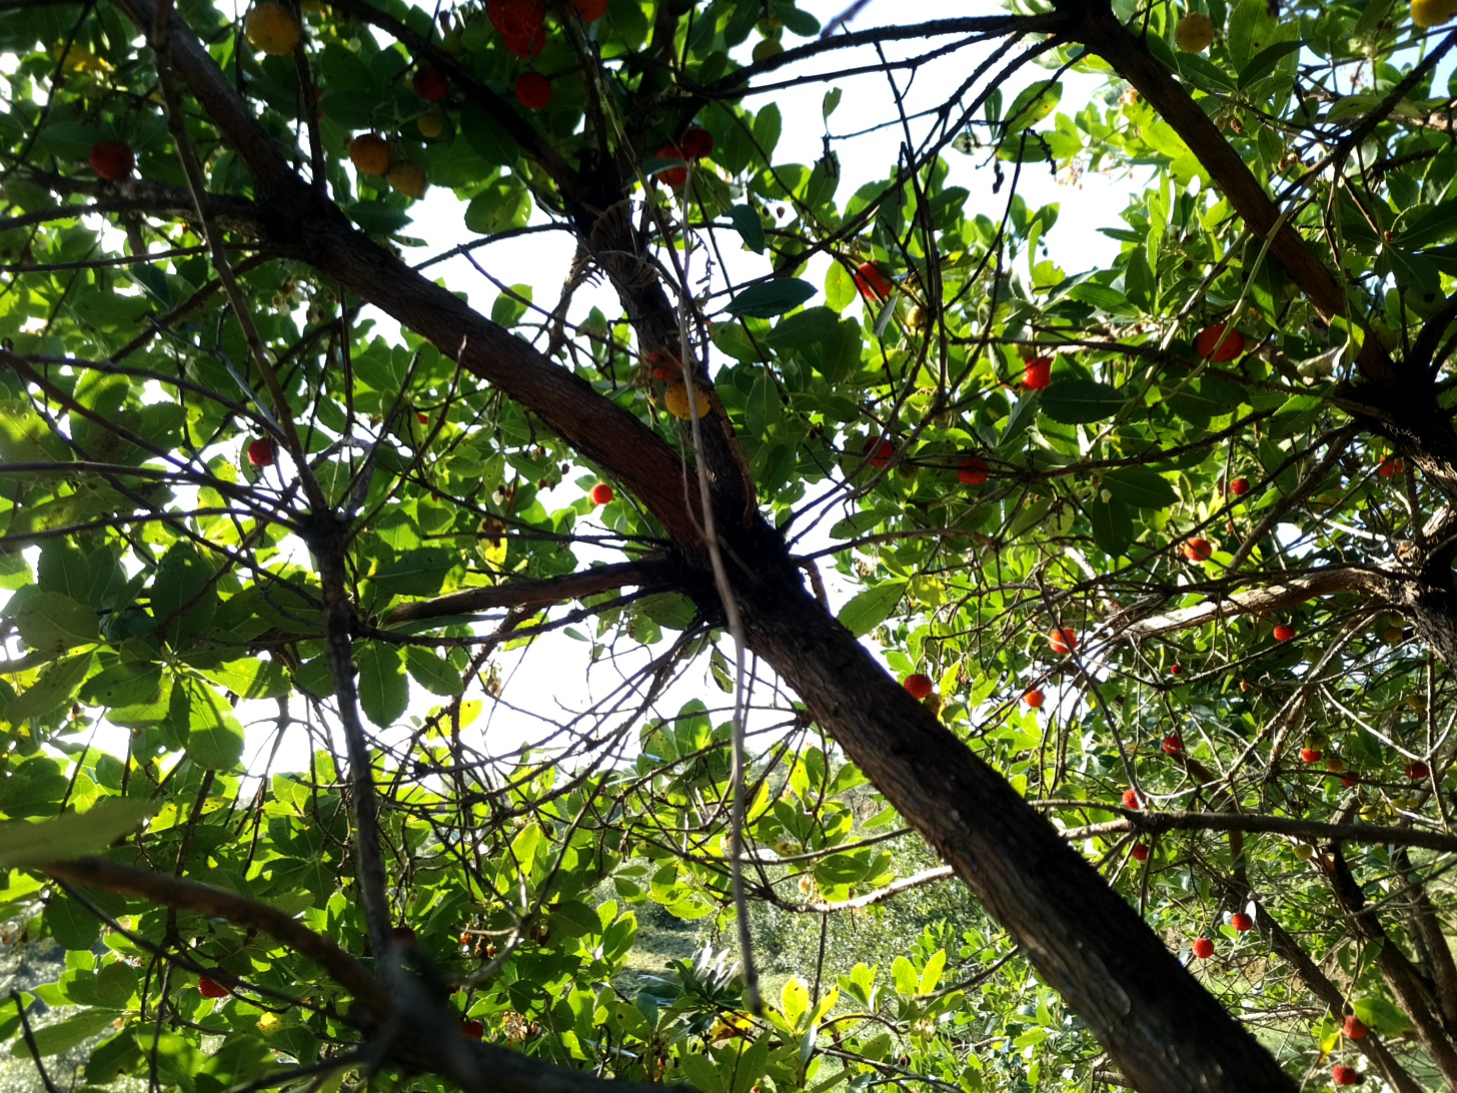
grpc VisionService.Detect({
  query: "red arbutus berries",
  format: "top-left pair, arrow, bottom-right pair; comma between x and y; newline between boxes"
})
593,486 -> 614,504
484,0 -> 546,37
414,65 -> 448,100
862,433 -> 893,465
1229,912 -> 1251,934
959,455 -> 987,483
1378,454 -> 1404,477
1343,1015 -> 1365,1039
1184,536 -> 1211,562
1122,787 -> 1144,808
1332,1062 -> 1357,1086
198,967 -> 237,1000
853,259 -> 892,300
505,23 -> 548,59
650,142 -> 696,184
1129,841 -> 1149,860
1273,624 -> 1295,642
1169,664 -> 1180,674
1019,354 -> 1057,389
461,1019 -> 486,1043
685,125 -> 716,153
1162,736 -> 1180,753
1342,771 -> 1357,786
511,71 -> 554,107
1197,320 -> 1237,361
90,139 -> 135,181
1301,745 -> 1321,766
1406,761 -> 1429,779
902,673 -> 931,701
571,0 -> 607,23
1049,627 -> 1077,653
1230,475 -> 1250,497
1025,689 -> 1045,708
1193,938 -> 1214,958
247,439 -> 275,465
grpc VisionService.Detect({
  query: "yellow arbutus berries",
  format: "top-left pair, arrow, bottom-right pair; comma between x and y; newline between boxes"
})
385,157 -> 428,196
347,132 -> 392,174
906,306 -> 931,328
1386,627 -> 1403,643
243,3 -> 299,55
663,378 -> 713,420
1175,13 -> 1219,53
1407,0 -> 1456,35
1327,757 -> 1343,772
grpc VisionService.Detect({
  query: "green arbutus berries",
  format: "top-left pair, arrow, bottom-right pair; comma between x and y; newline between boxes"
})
1295,845 -> 1312,860
416,111 -> 447,141
1360,806 -> 1377,822
1388,611 -> 1409,629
